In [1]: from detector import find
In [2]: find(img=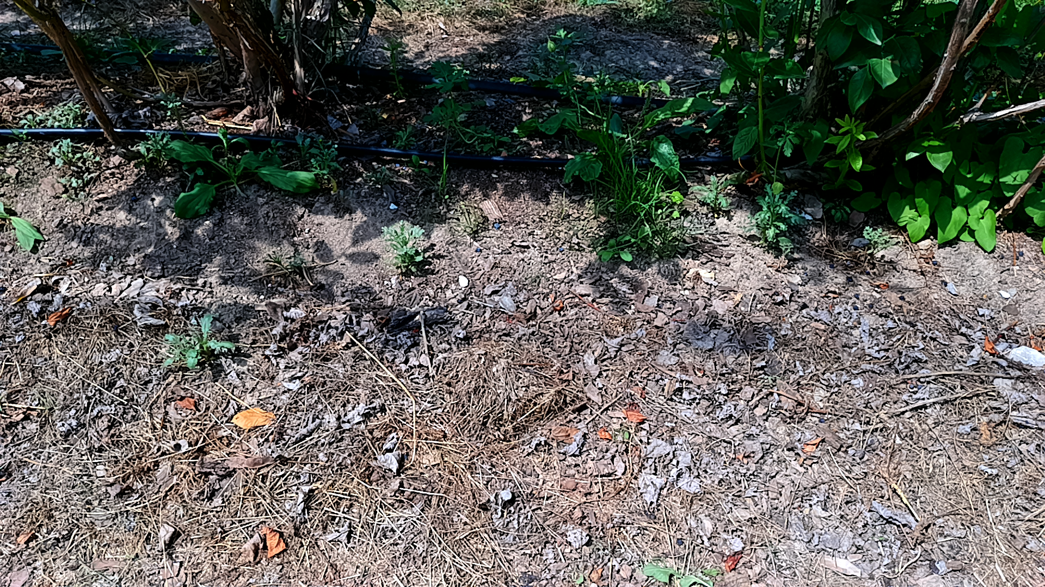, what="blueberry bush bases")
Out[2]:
[110,14,382,175]
[752,20,1009,232]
